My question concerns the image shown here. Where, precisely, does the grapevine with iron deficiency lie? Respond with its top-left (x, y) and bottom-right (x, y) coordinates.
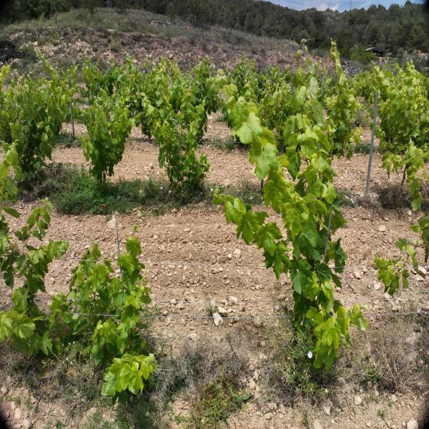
top-left (213, 100), bottom-right (365, 386)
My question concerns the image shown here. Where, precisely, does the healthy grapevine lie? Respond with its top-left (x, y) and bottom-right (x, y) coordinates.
top-left (0, 228), bottom-right (174, 407)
